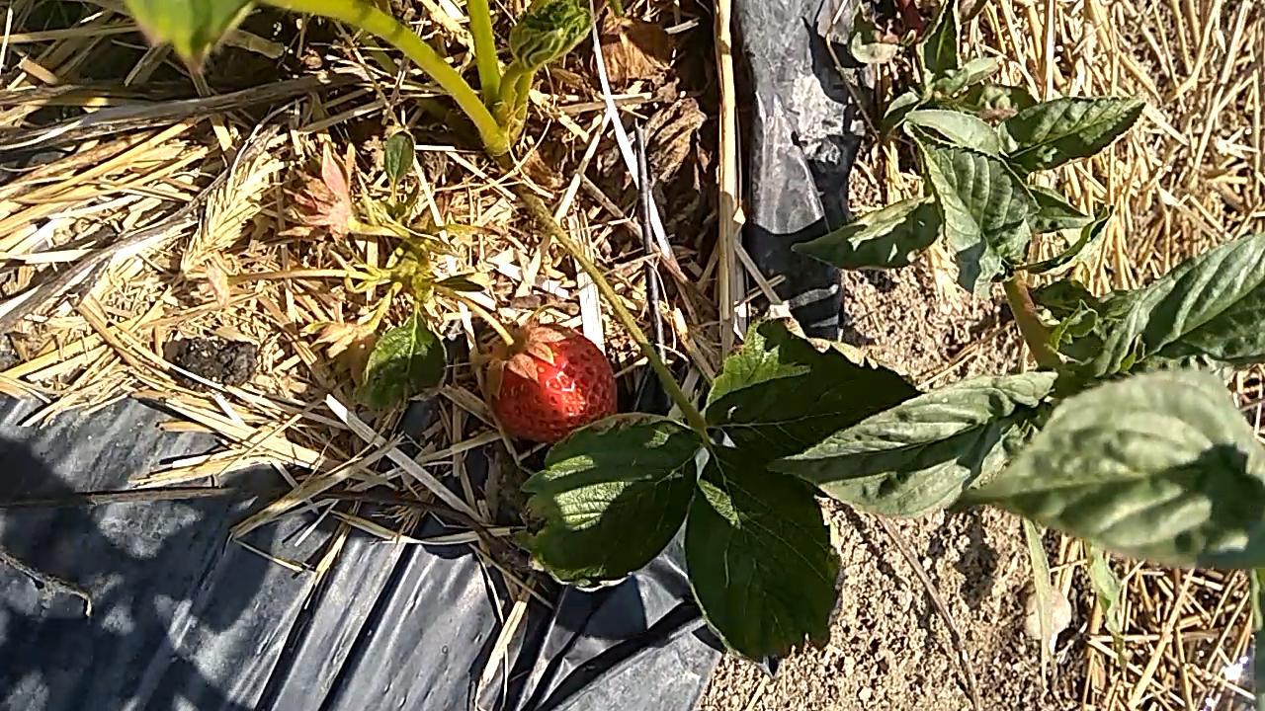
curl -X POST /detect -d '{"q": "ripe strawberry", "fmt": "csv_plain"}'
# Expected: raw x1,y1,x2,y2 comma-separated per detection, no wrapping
480,319,633,454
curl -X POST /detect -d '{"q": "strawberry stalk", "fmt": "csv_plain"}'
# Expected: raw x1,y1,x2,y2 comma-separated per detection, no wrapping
473,304,532,365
